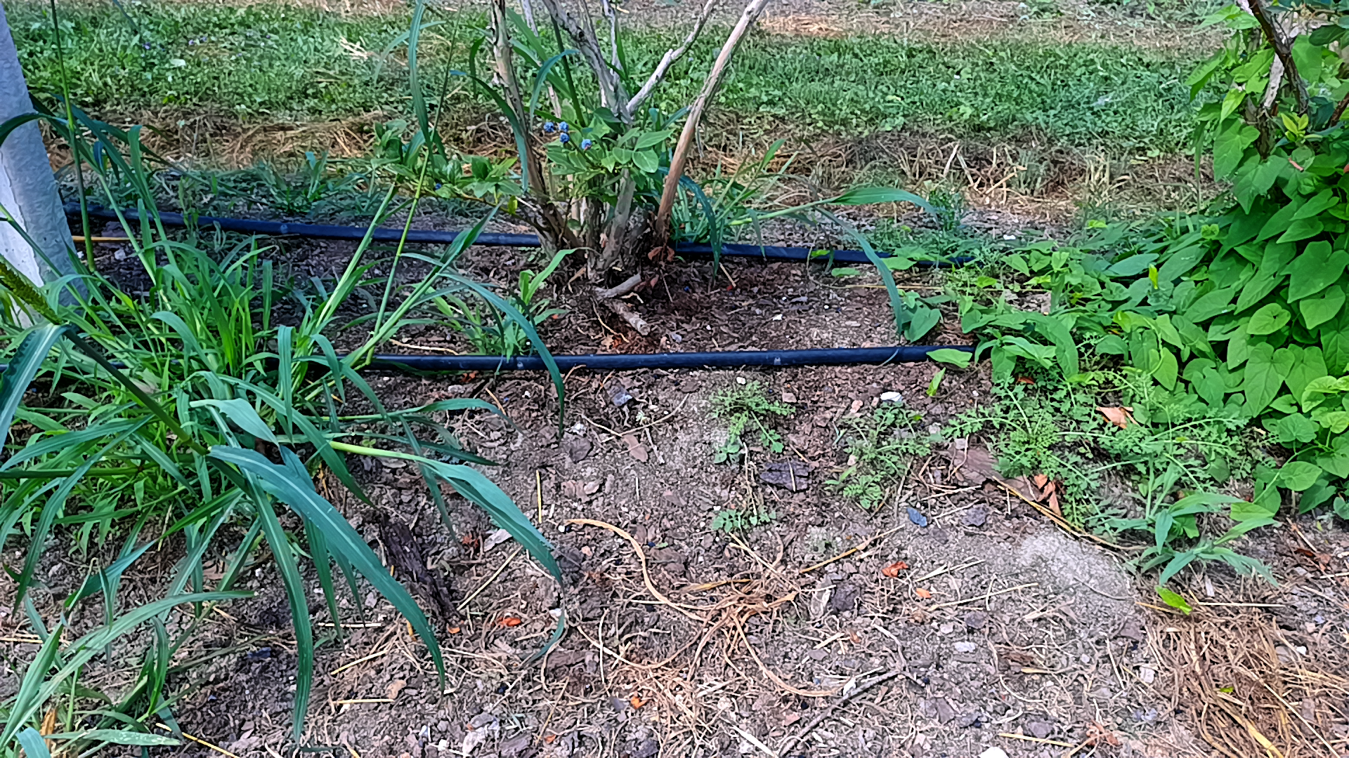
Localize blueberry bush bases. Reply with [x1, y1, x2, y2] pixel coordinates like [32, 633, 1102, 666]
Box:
[1232, 25, 1349, 293]
[469, 91, 733, 362]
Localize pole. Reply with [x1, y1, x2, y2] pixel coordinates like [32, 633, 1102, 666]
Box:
[1, 22, 107, 385]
